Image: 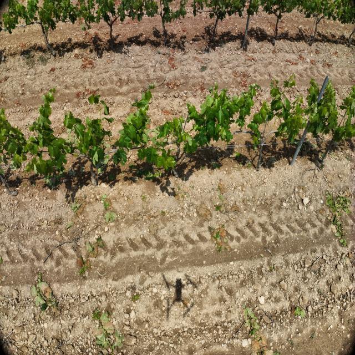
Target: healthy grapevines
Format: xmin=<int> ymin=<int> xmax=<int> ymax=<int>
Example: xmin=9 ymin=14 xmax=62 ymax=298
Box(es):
xmin=225 ymin=85 xmax=306 ymax=180
xmin=0 ymin=101 xmax=50 ymax=198
xmin=50 ymin=90 xmax=149 ymax=195
xmin=147 ymin=84 xmax=232 ymax=189
xmin=304 ymin=76 xmax=355 ymax=176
